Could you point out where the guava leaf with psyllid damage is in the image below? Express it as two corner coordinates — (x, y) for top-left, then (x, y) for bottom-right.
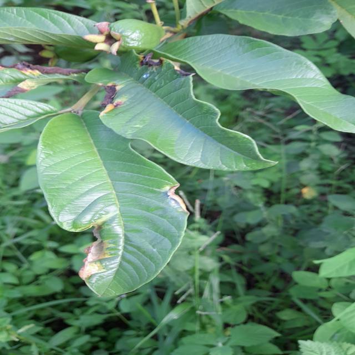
(31, 111), (196, 307)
